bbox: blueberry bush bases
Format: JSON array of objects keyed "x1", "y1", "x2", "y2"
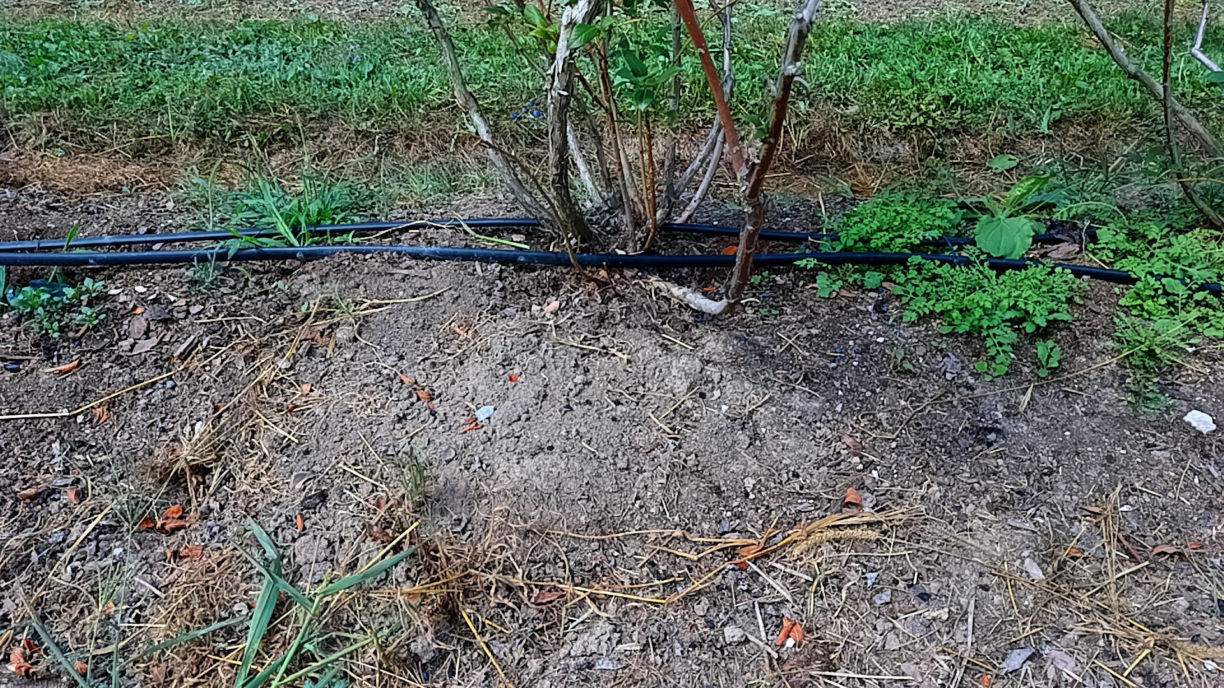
[
  {"x1": 1130, "y1": 67, "x2": 1224, "y2": 306},
  {"x1": 476, "y1": 97, "x2": 791, "y2": 336}
]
